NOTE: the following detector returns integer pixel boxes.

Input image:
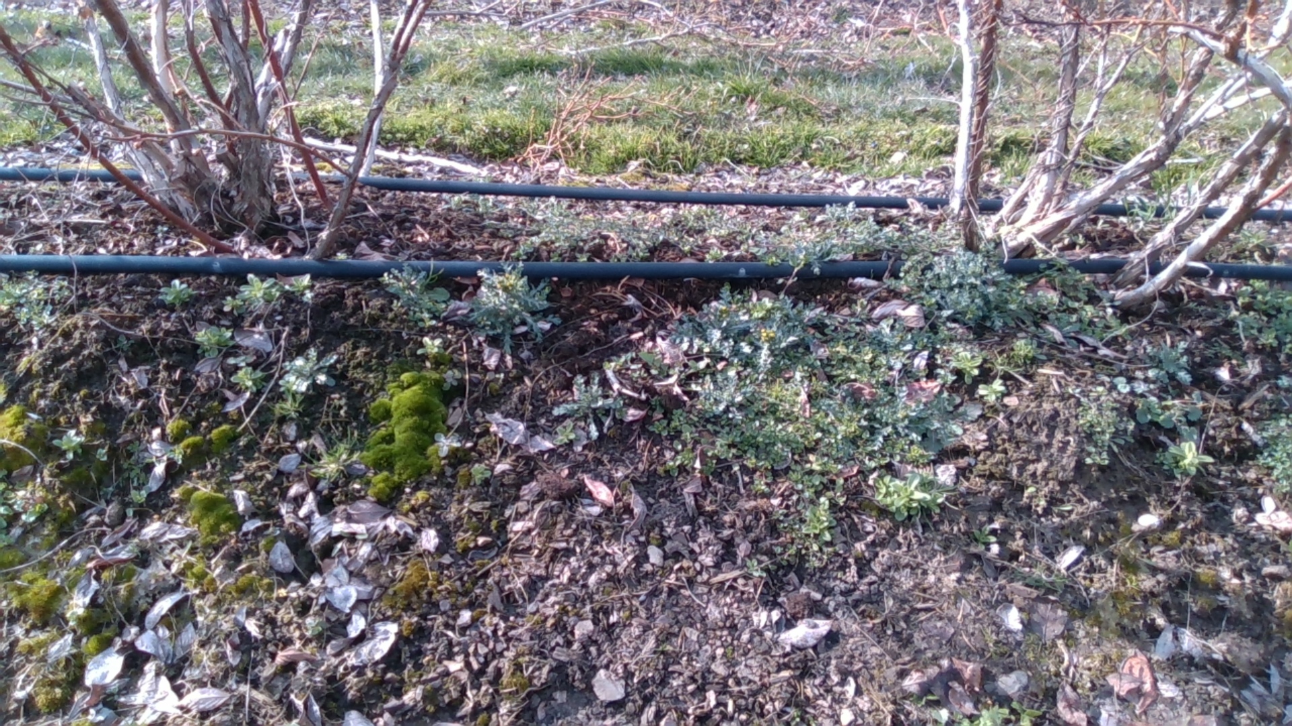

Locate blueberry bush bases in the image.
[929,77,1282,344]
[43,34,412,294]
